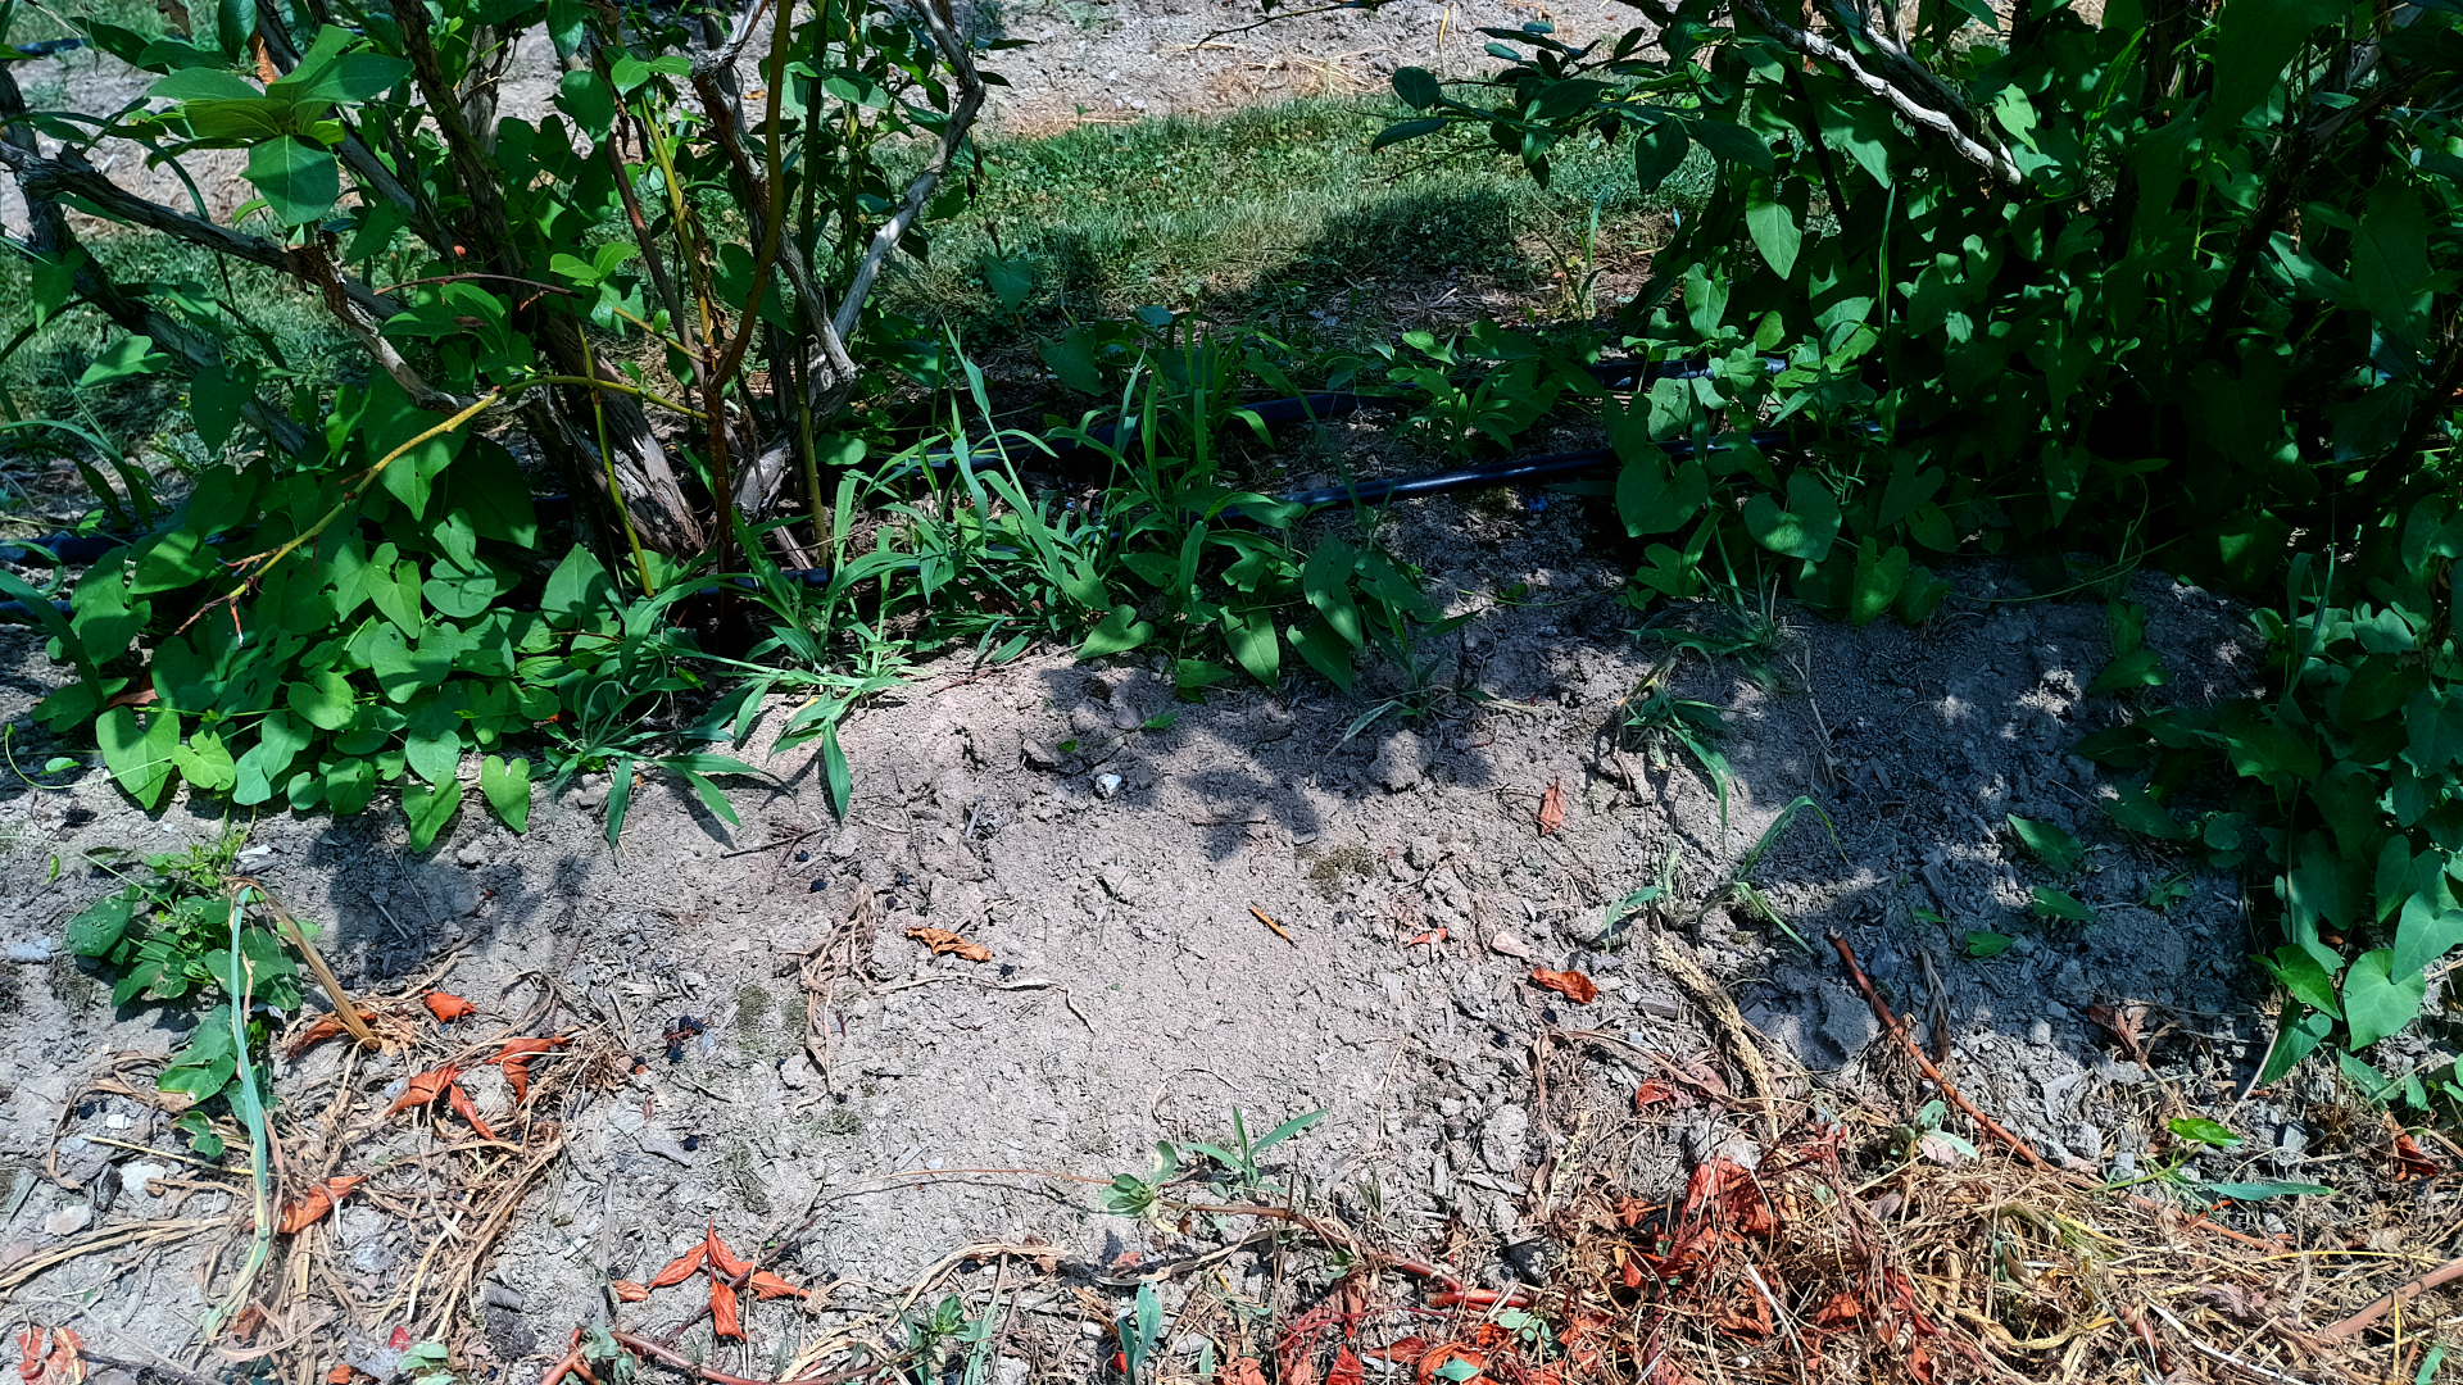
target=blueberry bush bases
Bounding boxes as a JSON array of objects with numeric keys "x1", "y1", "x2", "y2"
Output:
[
  {"x1": 1710, "y1": 50, "x2": 2432, "y2": 551},
  {"x1": 321, "y1": 278, "x2": 956, "y2": 758}
]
